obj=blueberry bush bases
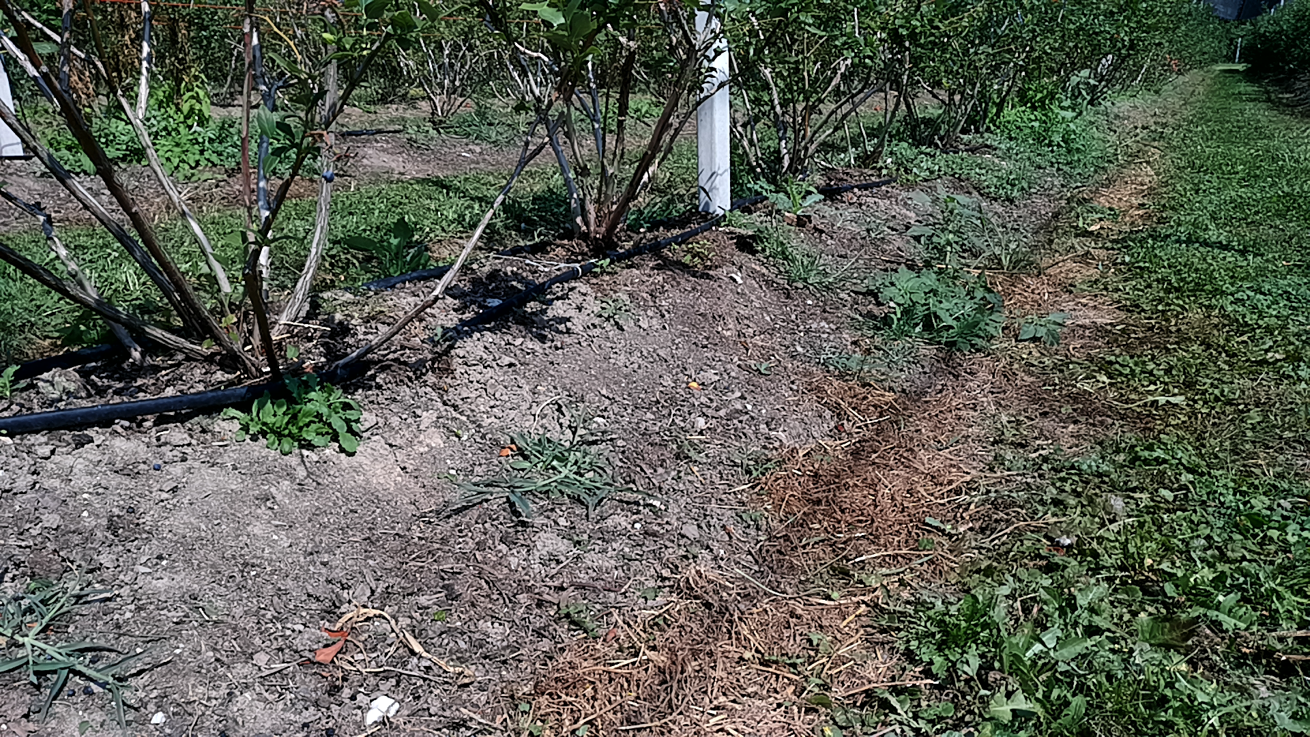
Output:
[527,150,678,279]
[742,116,845,207]
[889,112,976,167]
[823,126,894,178]
[412,97,471,140]
[46,214,438,440]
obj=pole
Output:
[682,11,746,225]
